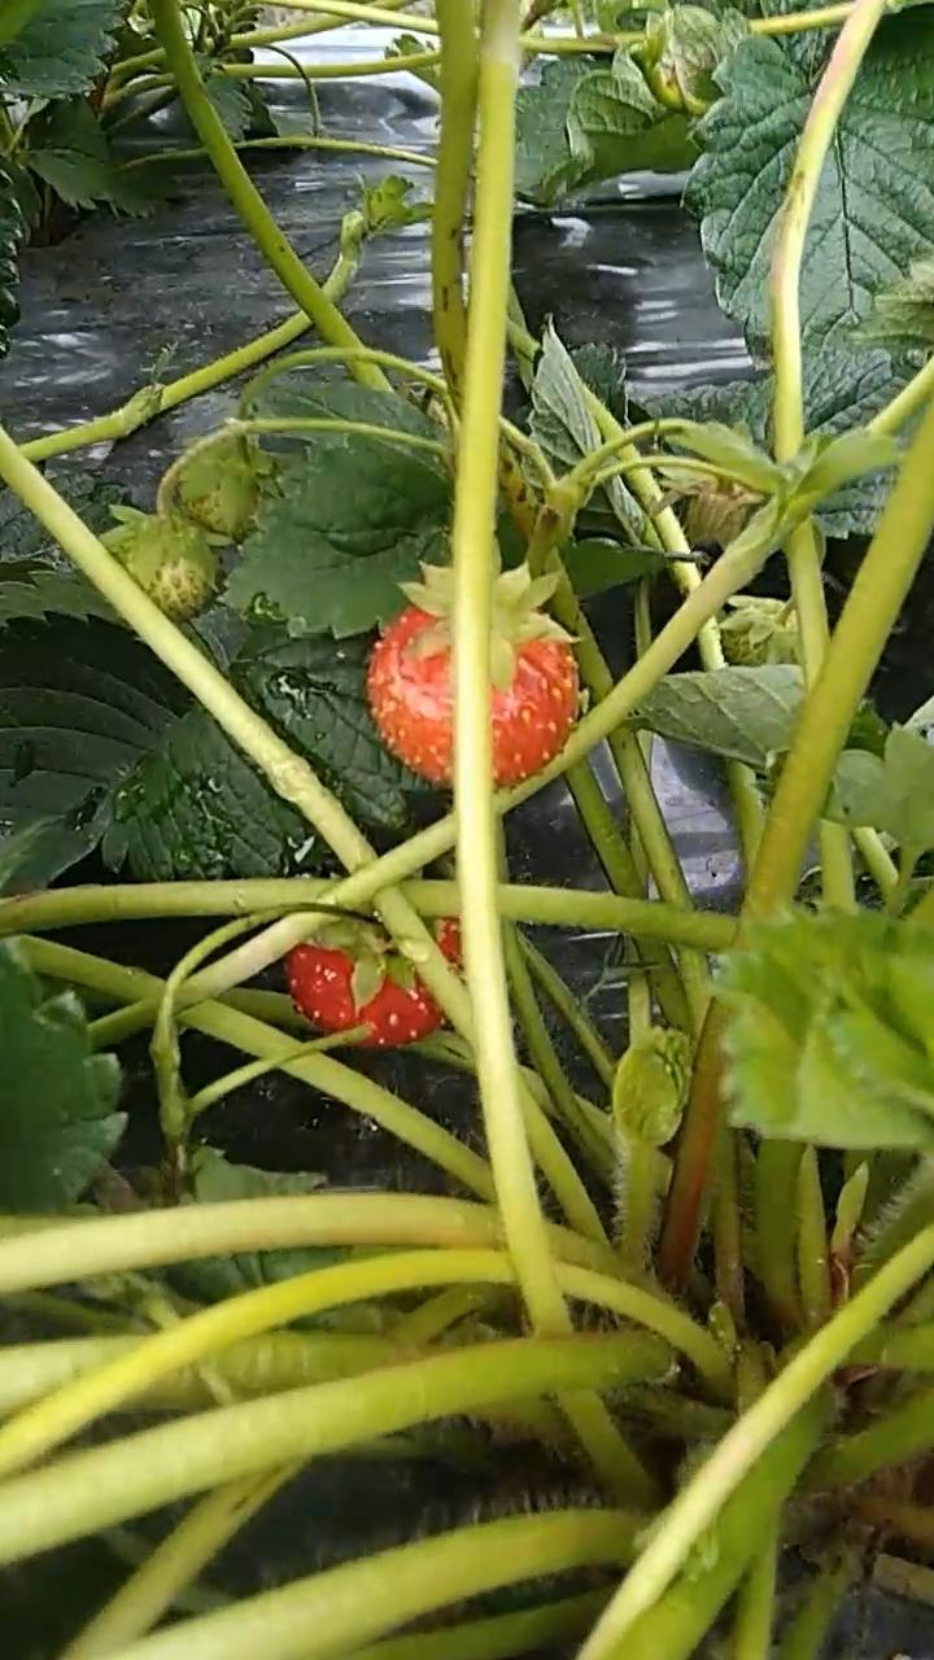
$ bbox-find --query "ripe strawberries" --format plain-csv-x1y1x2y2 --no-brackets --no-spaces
365,581,569,803
282,910,465,1046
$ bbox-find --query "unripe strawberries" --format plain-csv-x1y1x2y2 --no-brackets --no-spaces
101,516,228,621
168,450,270,525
